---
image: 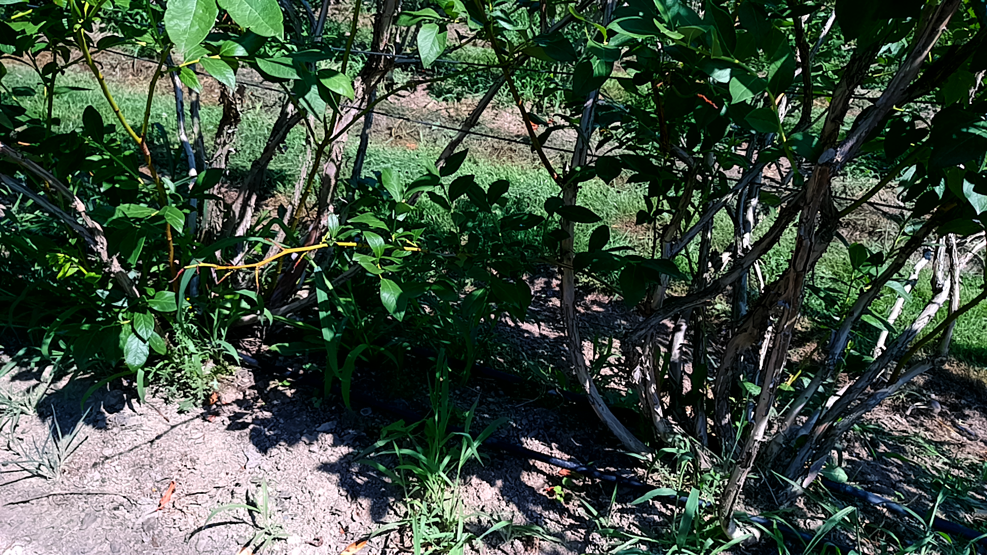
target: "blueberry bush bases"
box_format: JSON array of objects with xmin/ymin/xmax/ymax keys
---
[
  {"xmin": 52, "ymin": 161, "xmax": 364, "ymax": 427},
  {"xmin": 554, "ymin": 253, "xmax": 930, "ymax": 553}
]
